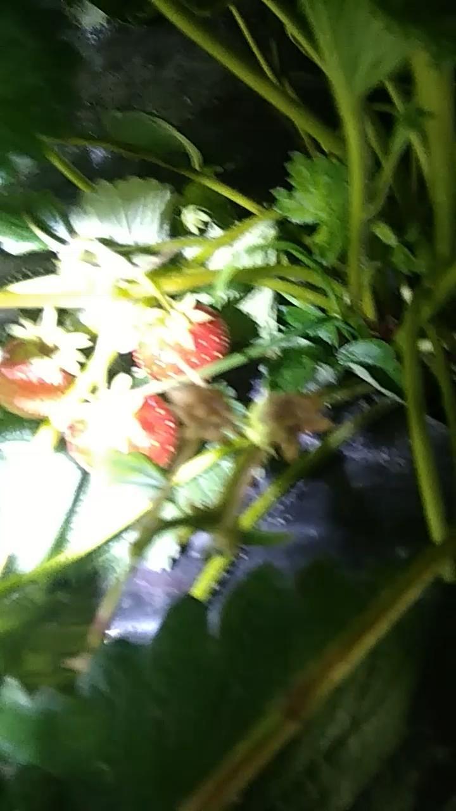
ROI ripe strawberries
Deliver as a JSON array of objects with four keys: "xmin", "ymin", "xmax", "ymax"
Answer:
[
  {"xmin": 58, "ymin": 382, "xmax": 183, "ymax": 474},
  {"xmin": 135, "ymin": 307, "xmax": 238, "ymax": 386},
  {"xmin": 0, "ymin": 356, "xmax": 83, "ymax": 426}
]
